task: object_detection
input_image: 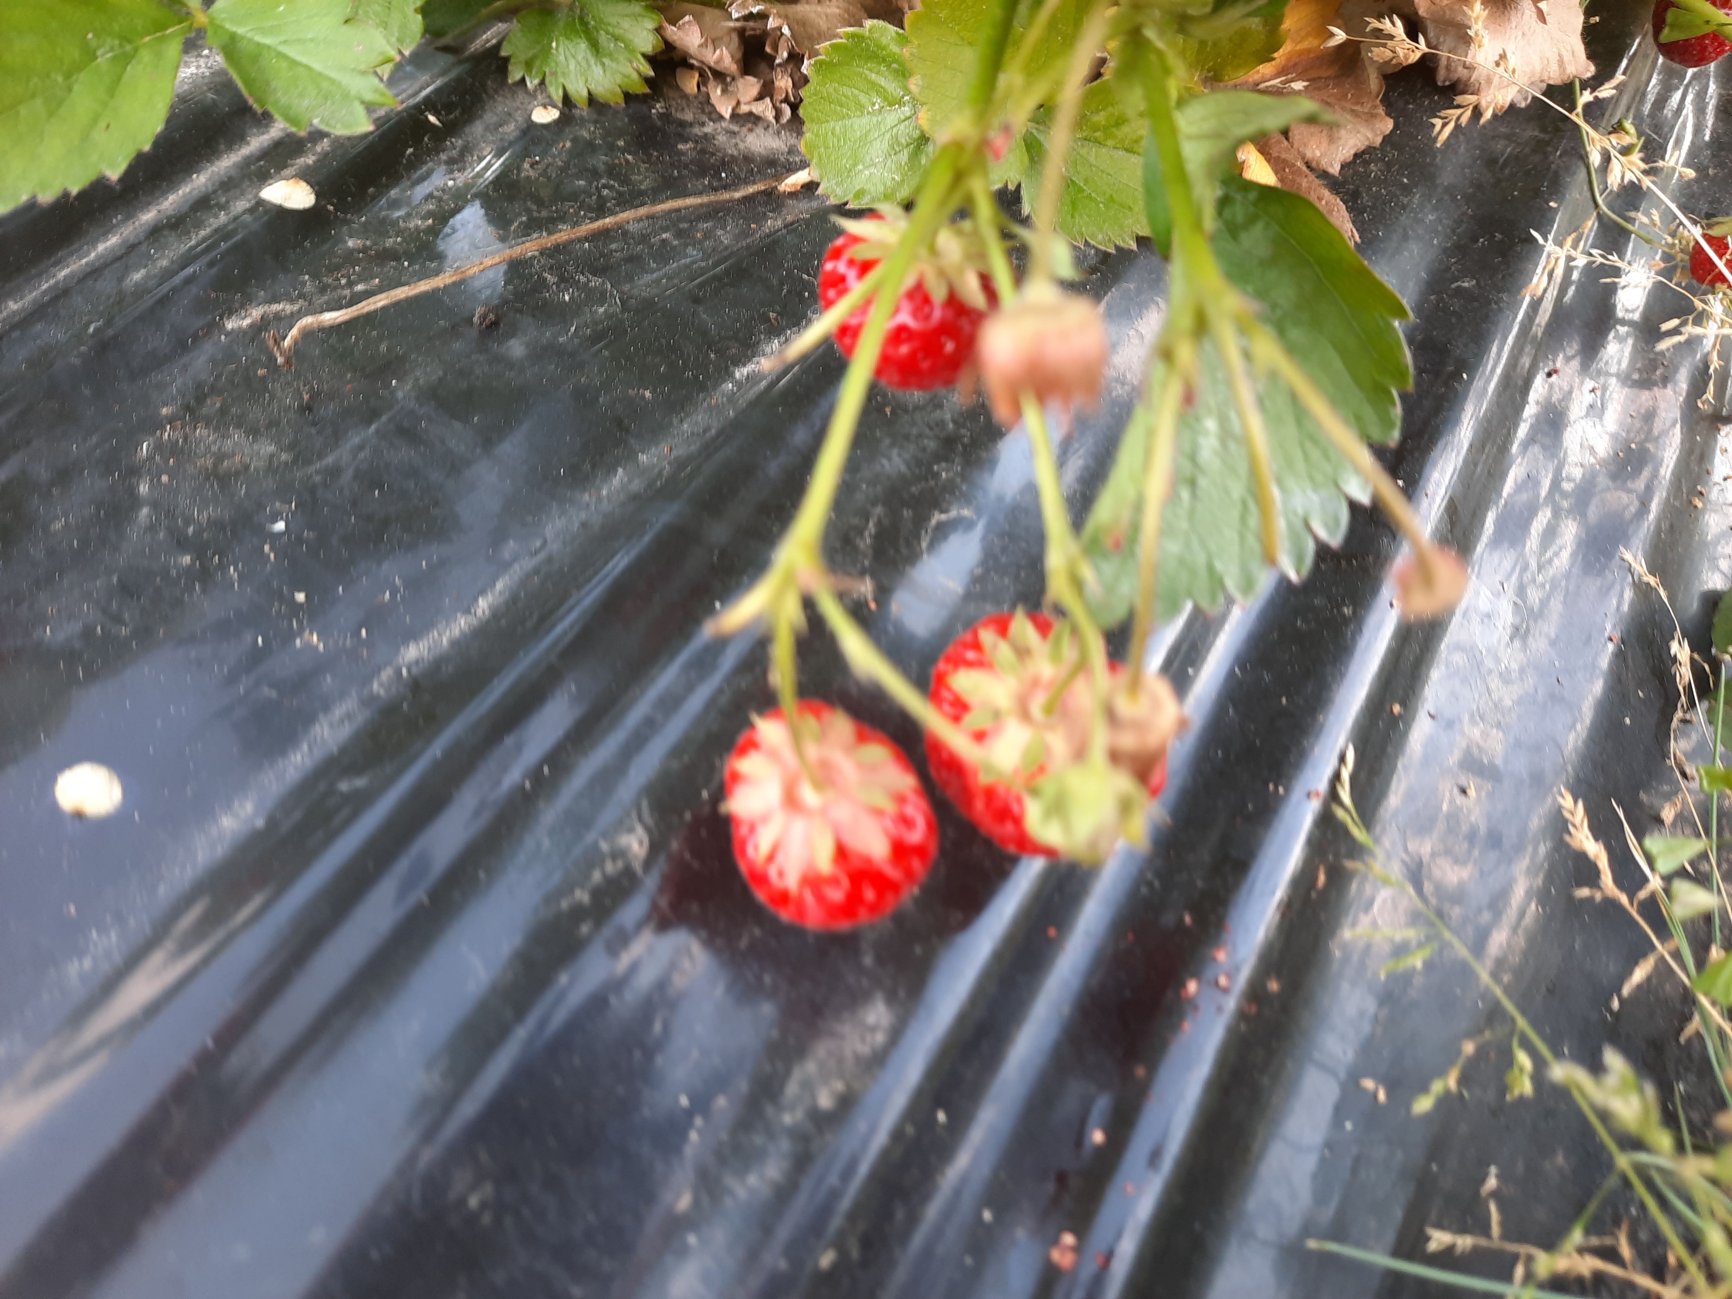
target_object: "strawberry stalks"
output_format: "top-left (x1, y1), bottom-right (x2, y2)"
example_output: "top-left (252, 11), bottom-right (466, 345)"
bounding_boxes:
top-left (883, 134), bottom-right (985, 286)
top-left (1014, 525), bottom-right (1096, 750)
top-left (768, 589), bottom-right (836, 819)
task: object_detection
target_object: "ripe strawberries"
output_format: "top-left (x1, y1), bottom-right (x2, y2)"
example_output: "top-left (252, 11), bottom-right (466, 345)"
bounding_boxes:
top-left (909, 610), bottom-right (1171, 865)
top-left (829, 207), bottom-right (989, 381)
top-left (727, 713), bottom-right (936, 919)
